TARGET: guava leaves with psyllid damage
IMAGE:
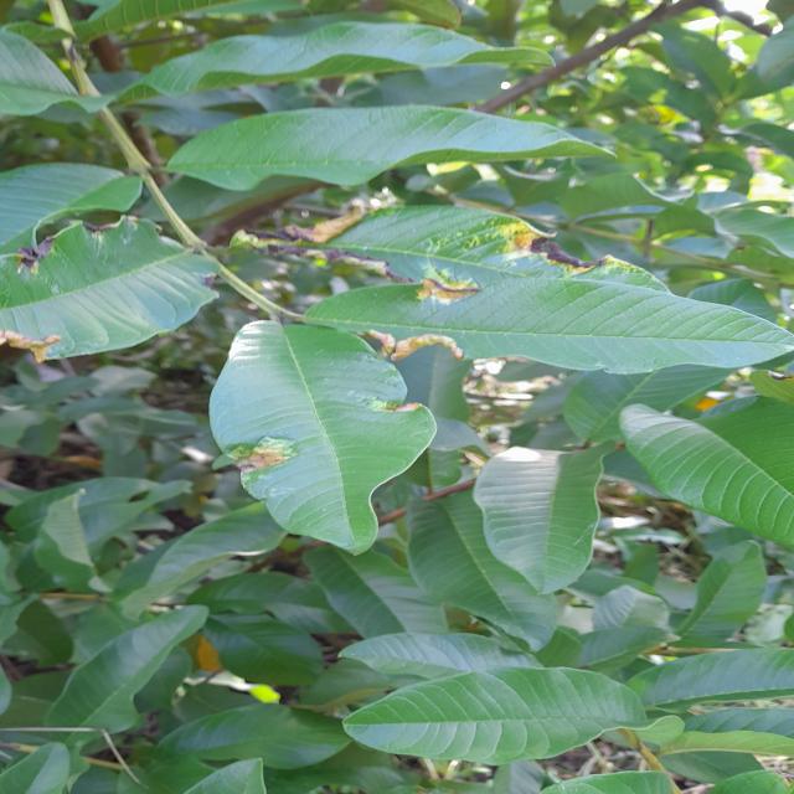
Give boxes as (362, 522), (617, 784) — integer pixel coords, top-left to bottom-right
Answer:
(208, 309), (451, 562)
(269, 263), (790, 378)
